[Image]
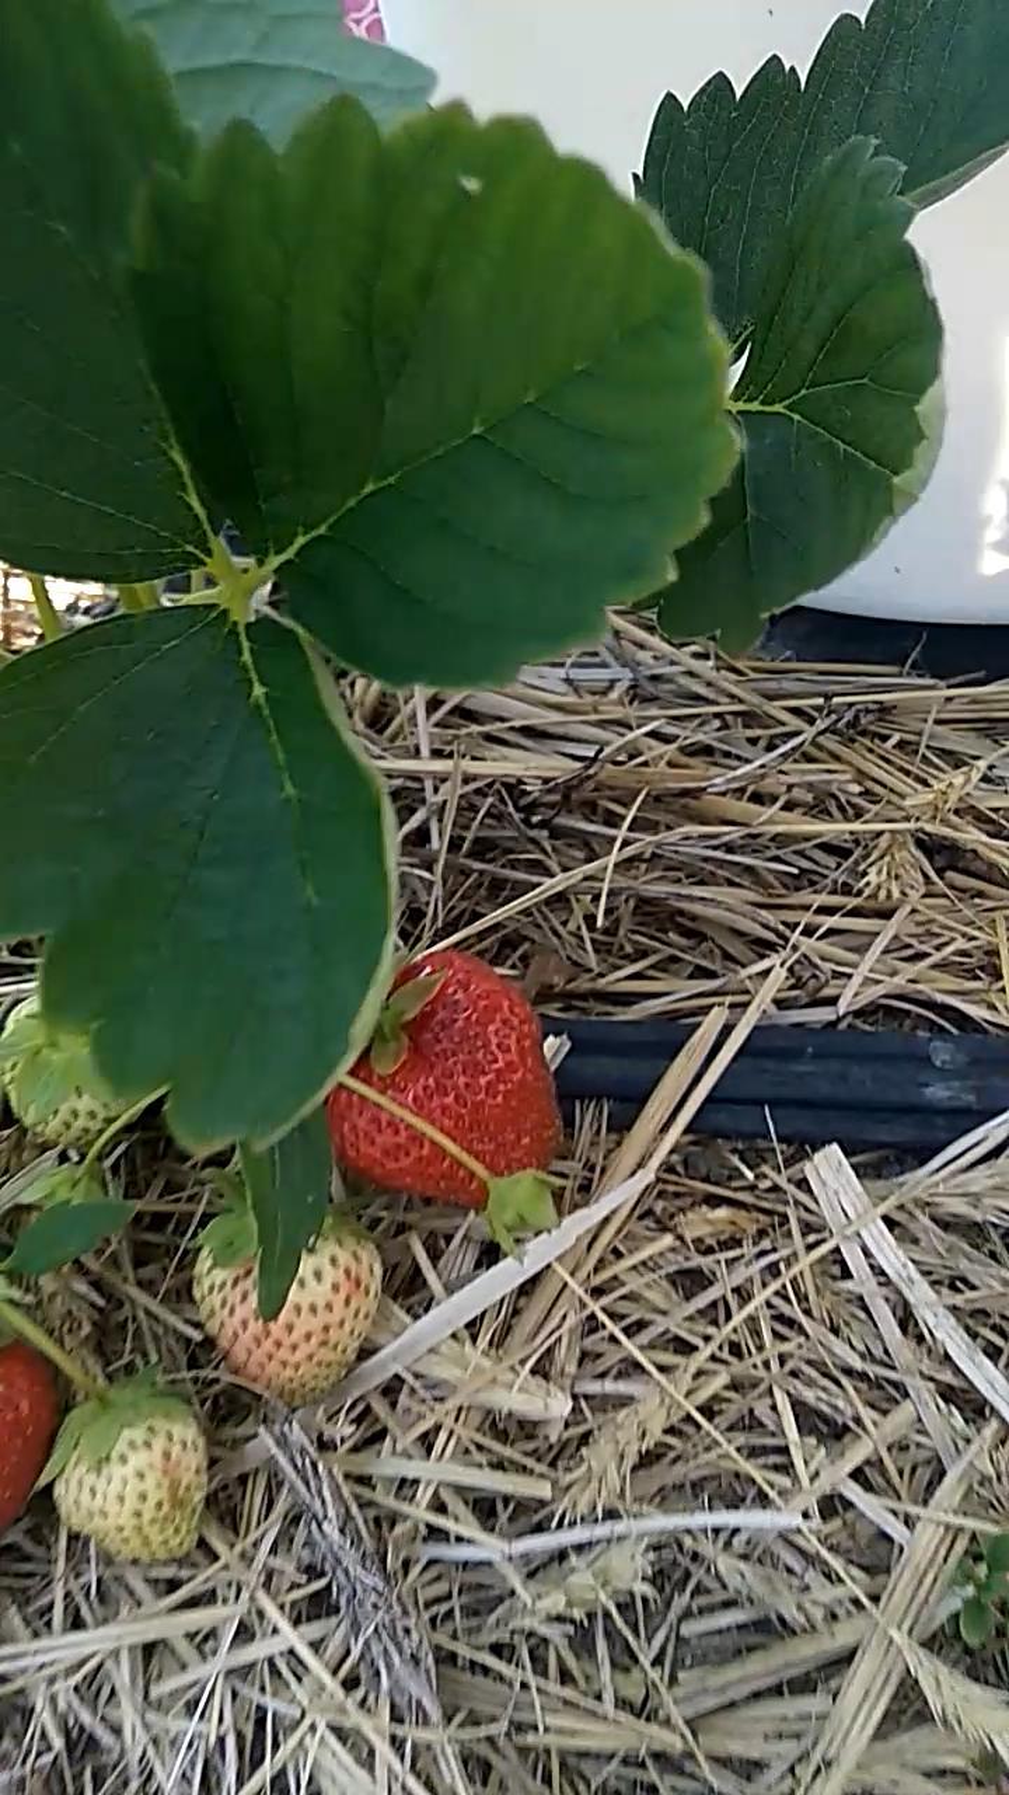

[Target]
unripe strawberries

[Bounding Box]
[29,1383,251,1575]
[4,990,161,1153]
[186,1205,388,1418]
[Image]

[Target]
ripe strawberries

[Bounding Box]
[301,945,586,1230]
[0,1313,63,1544]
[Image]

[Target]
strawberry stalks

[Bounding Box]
[451,1122,579,1271]
[42,1311,123,1432]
